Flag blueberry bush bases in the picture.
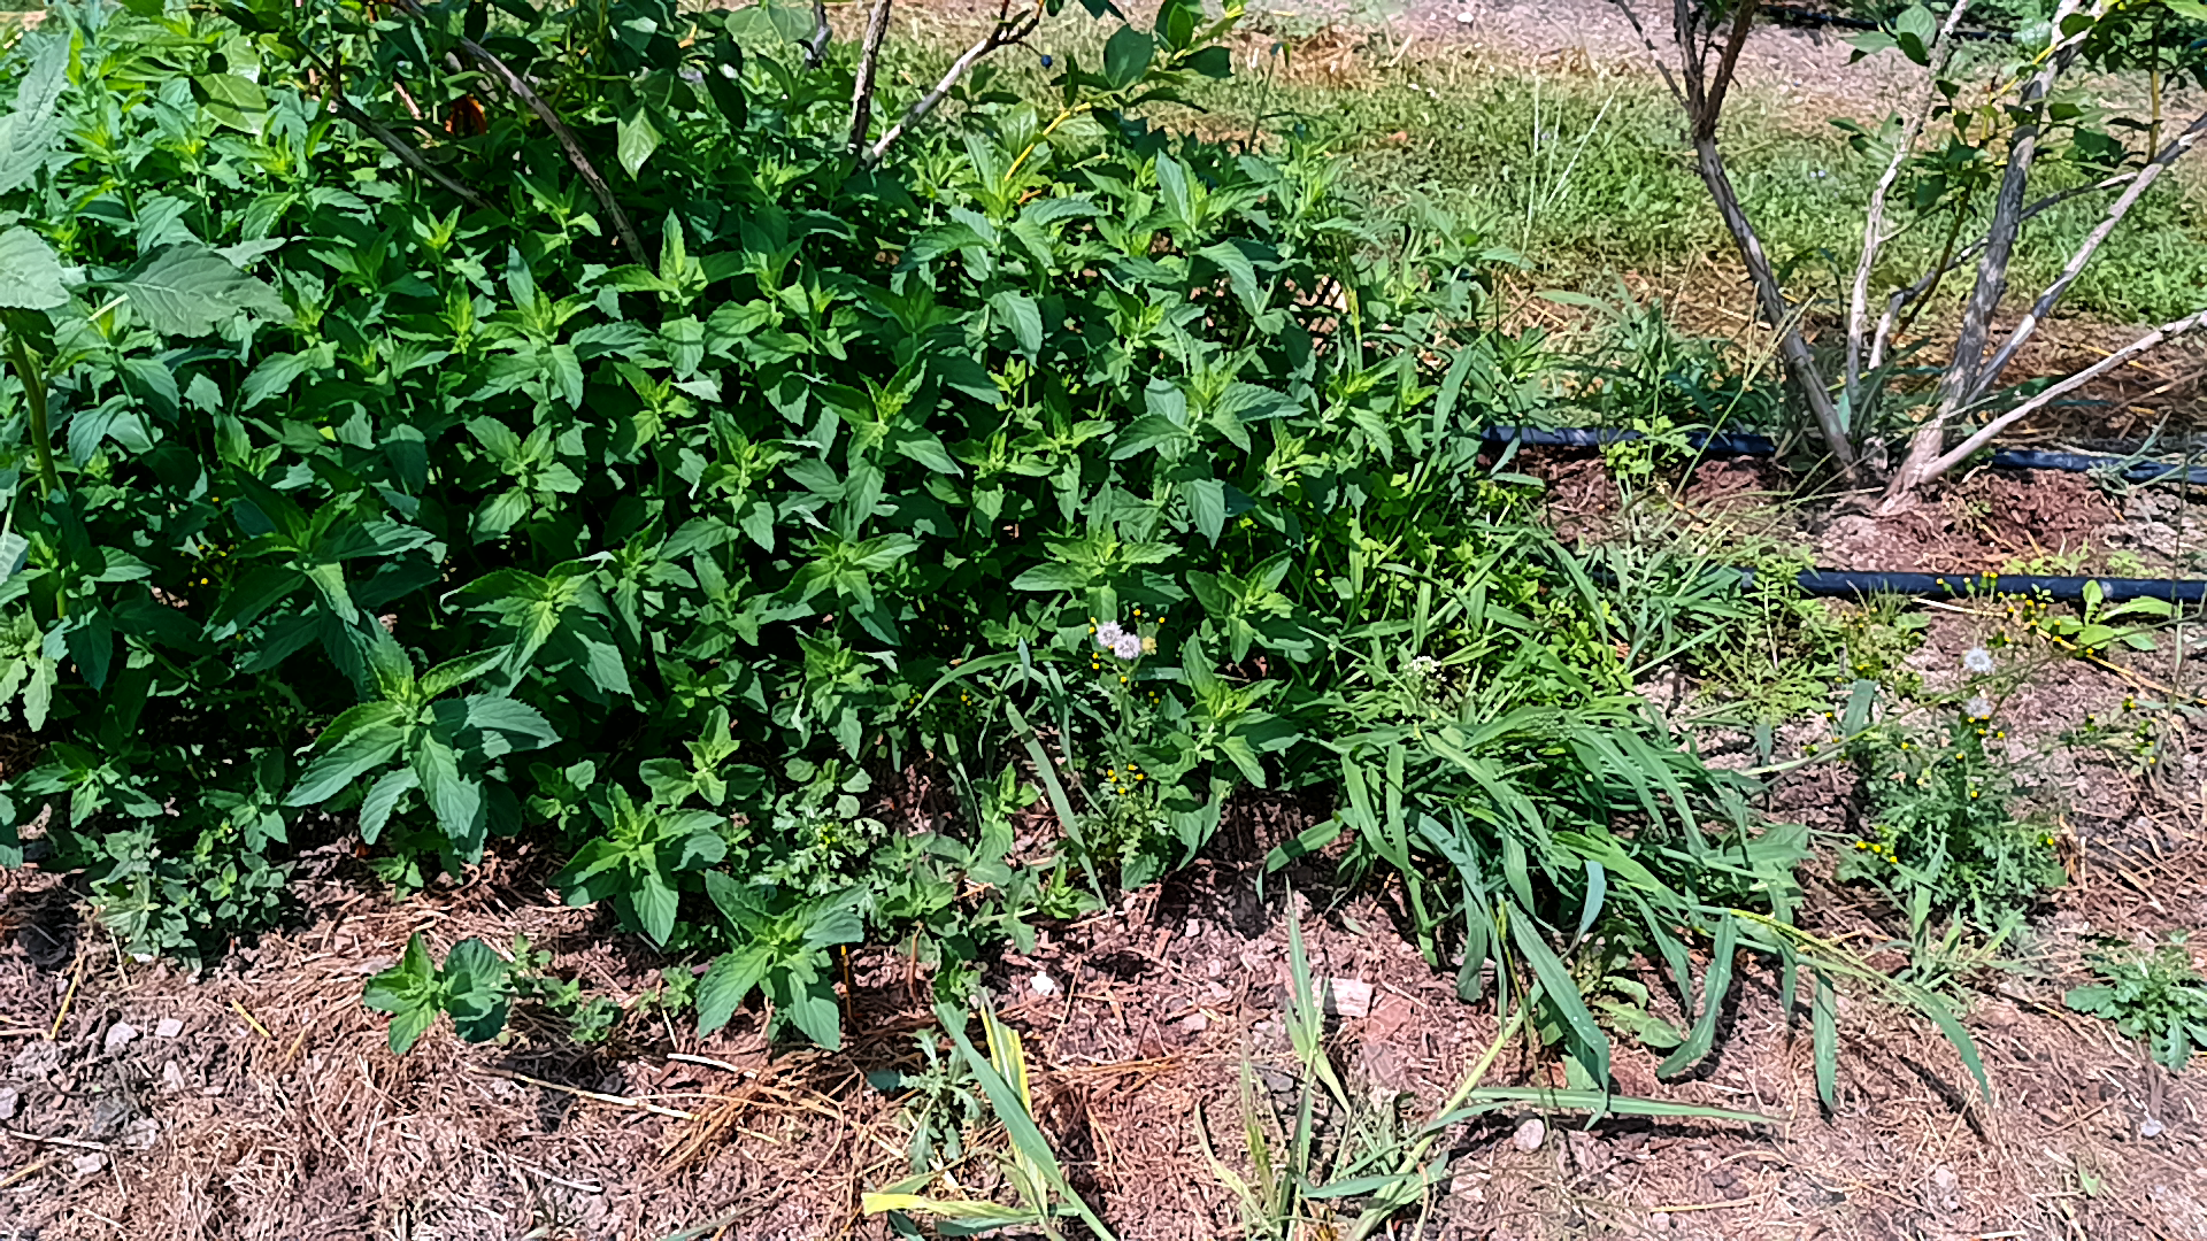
[391,26,1017,503]
[1669,191,2117,563]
